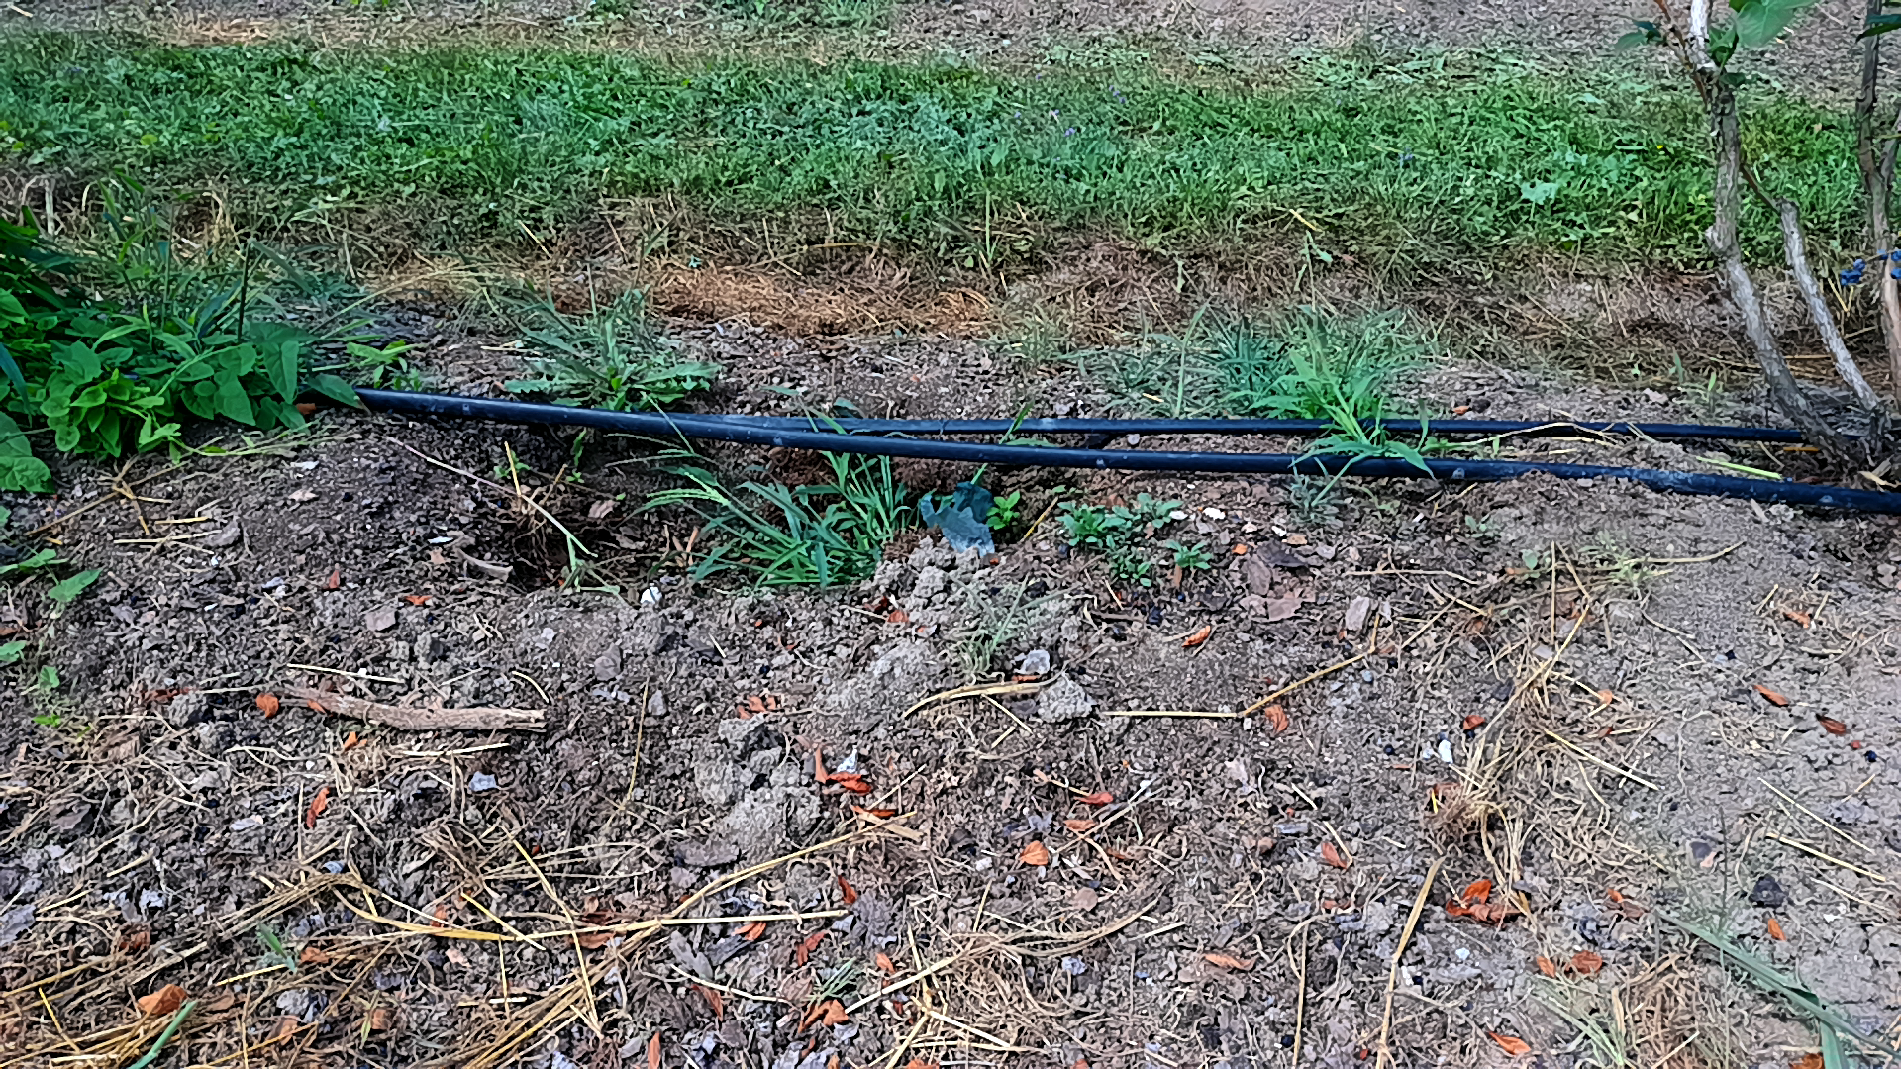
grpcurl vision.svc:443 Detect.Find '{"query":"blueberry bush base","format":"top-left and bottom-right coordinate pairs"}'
top-left (1686, 195), bottom-right (1899, 559)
